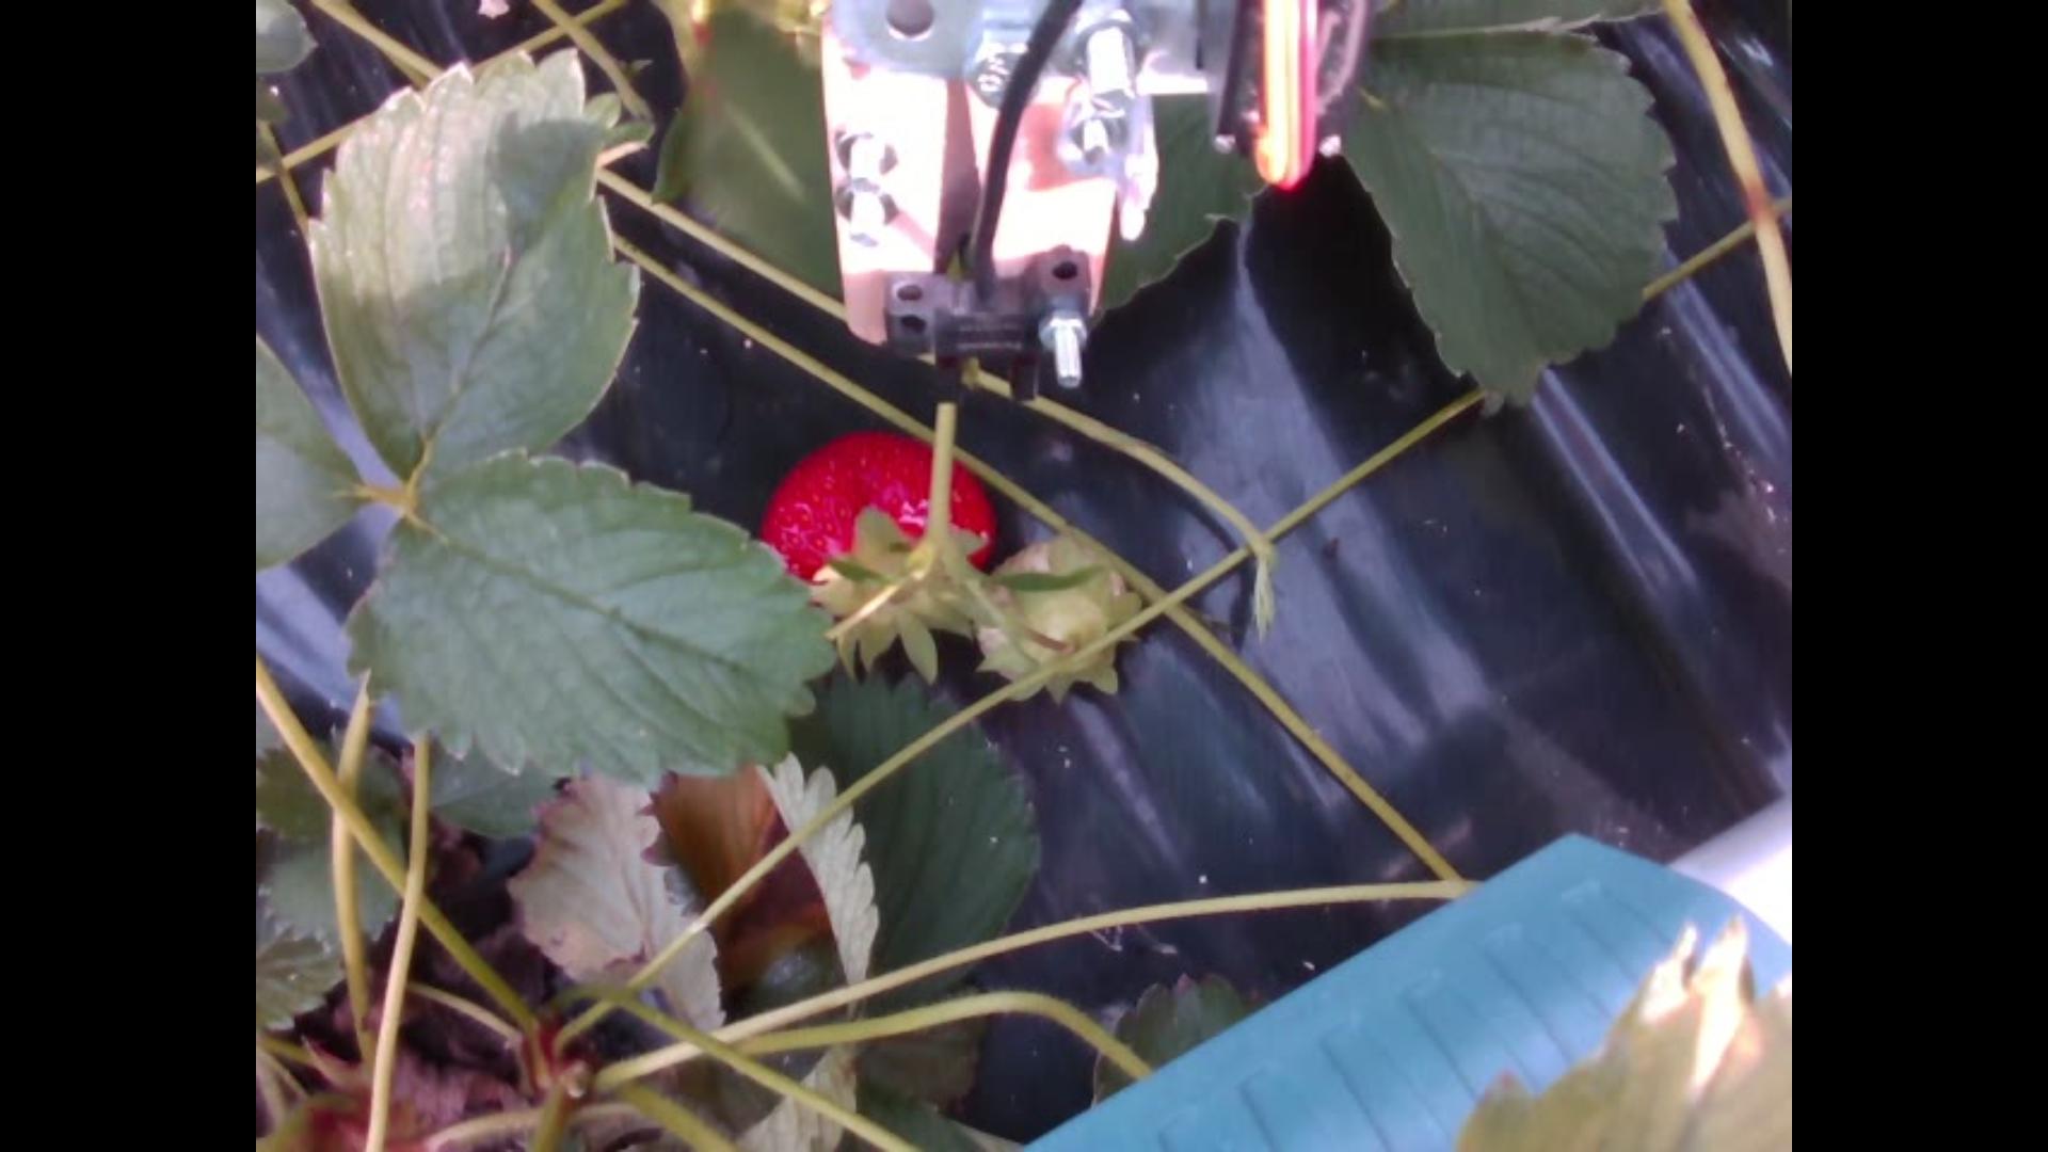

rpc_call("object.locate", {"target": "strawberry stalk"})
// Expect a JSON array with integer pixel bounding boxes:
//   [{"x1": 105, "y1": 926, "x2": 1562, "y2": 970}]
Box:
[{"x1": 802, "y1": 558, "x2": 923, "y2": 660}]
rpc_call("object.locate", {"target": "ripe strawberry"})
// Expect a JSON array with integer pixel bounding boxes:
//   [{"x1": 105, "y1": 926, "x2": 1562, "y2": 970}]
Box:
[{"x1": 760, "y1": 427, "x2": 1016, "y2": 660}]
